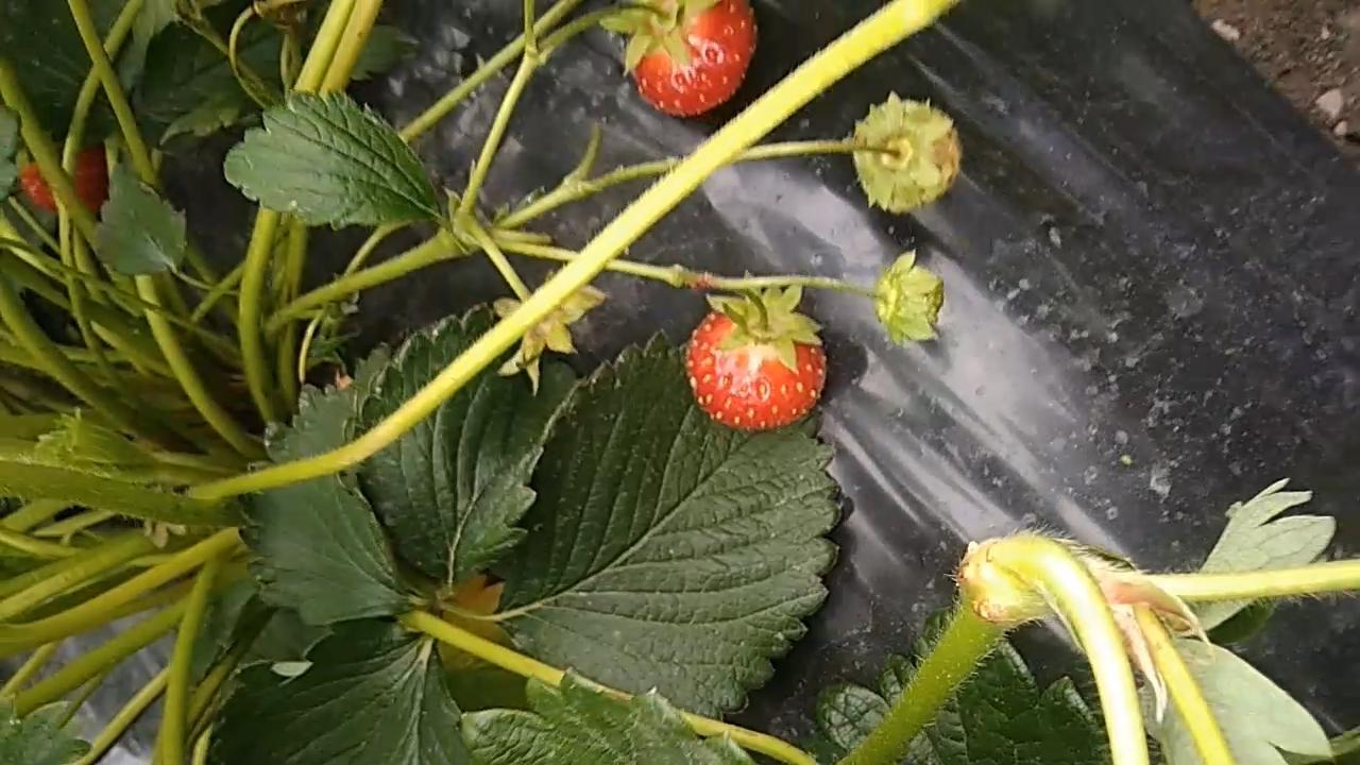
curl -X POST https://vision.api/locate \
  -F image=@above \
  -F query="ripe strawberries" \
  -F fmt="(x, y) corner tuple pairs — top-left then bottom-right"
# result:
(606, 3), (773, 113)
(680, 305), (833, 433)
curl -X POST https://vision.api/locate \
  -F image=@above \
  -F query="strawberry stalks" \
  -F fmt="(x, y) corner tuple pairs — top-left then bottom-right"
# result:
(735, 268), (774, 342)
(811, 125), (925, 168)
(573, 4), (681, 39)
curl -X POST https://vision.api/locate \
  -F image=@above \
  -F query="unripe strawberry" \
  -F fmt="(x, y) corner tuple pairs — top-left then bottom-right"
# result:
(844, 95), (971, 219)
